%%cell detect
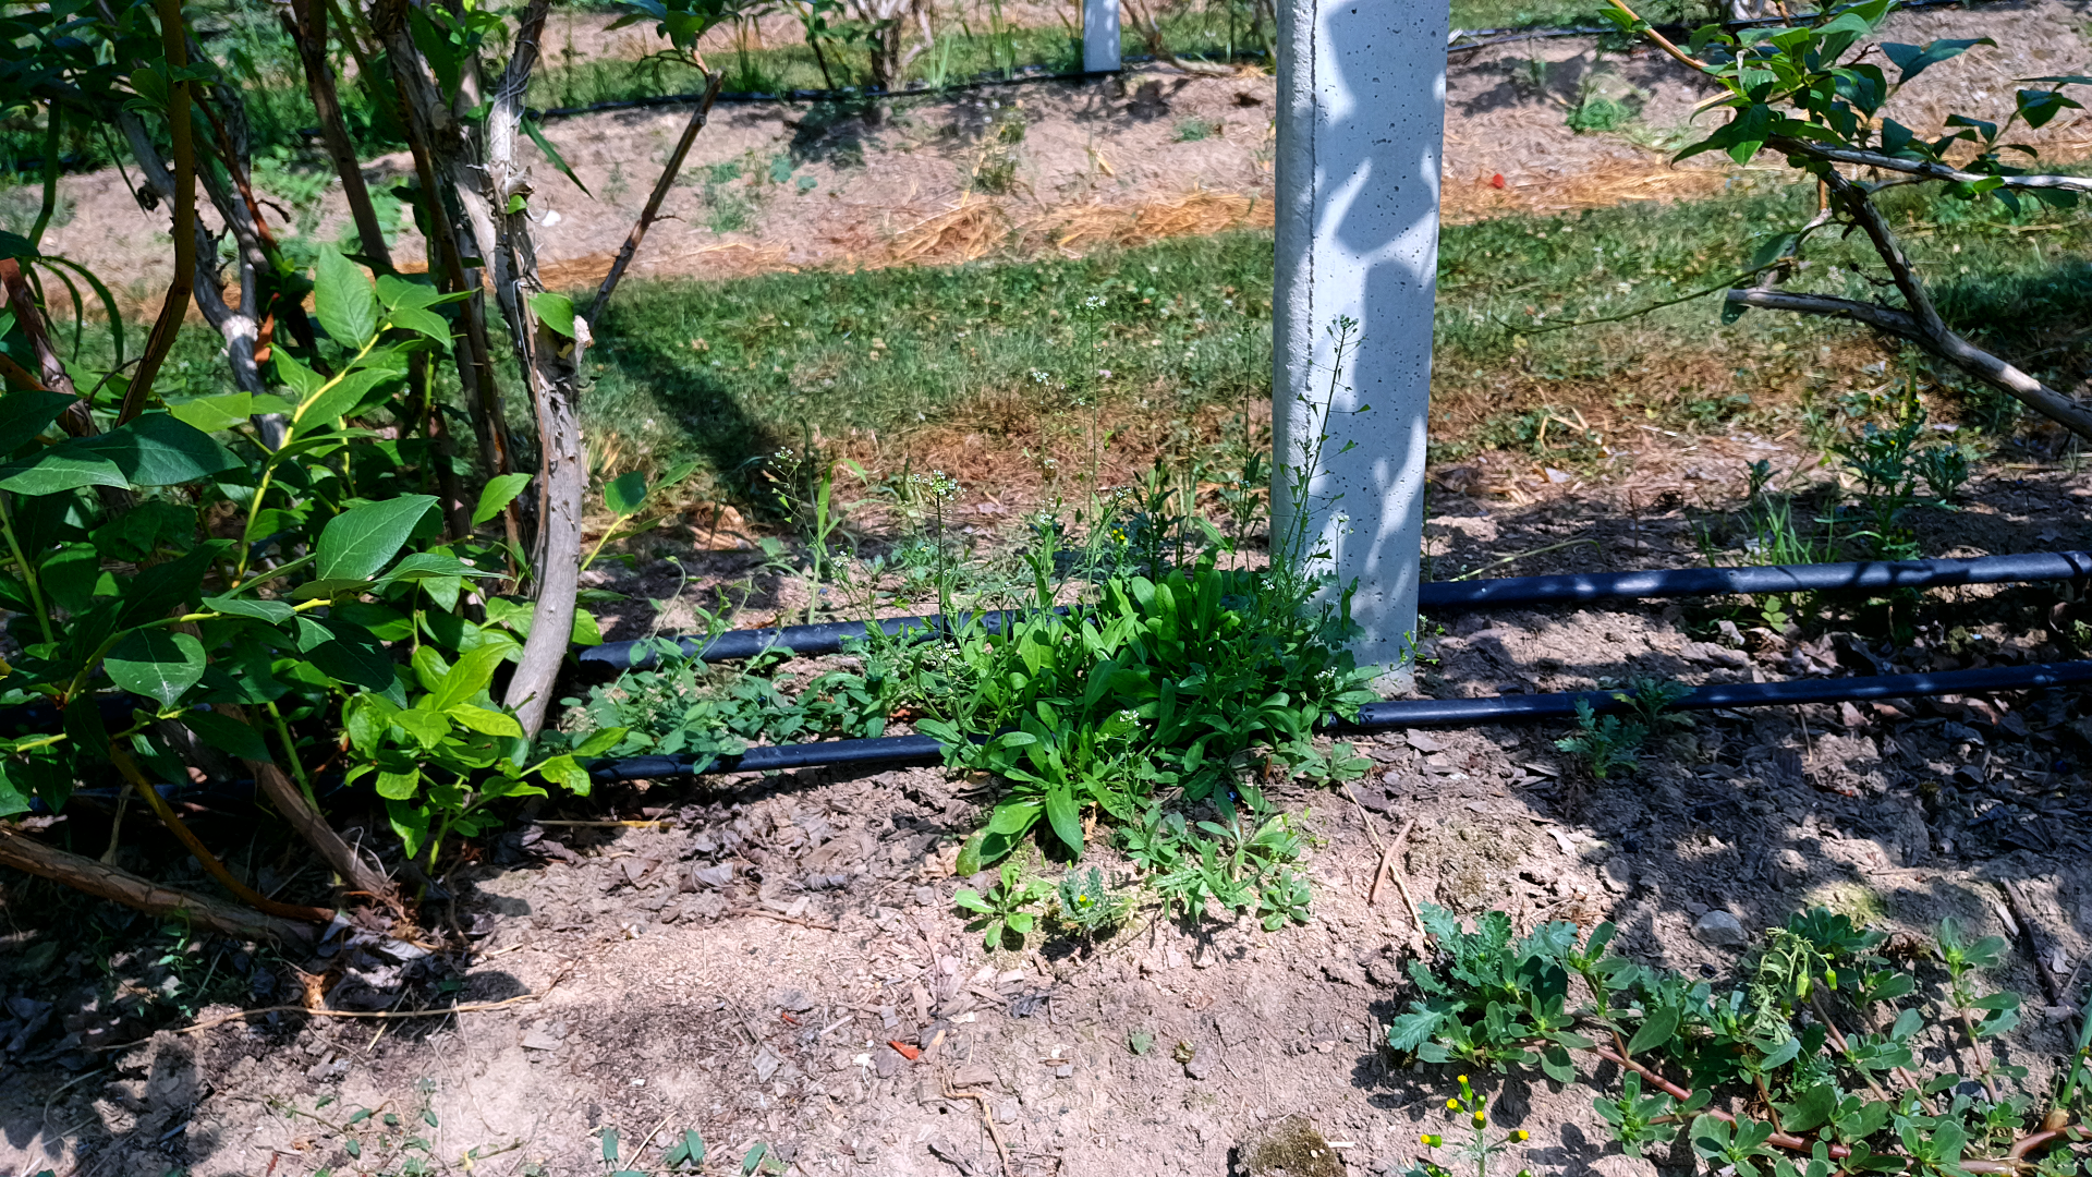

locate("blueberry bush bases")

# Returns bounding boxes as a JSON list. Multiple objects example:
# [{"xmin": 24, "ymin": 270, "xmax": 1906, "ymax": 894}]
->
[
  {"xmin": 1130, "ymin": 17, "xmax": 1187, "ymax": 70},
  {"xmin": 3, "ymin": 458, "xmax": 603, "ymax": 1034},
  {"xmin": 800, "ymin": 25, "xmax": 939, "ymax": 131}
]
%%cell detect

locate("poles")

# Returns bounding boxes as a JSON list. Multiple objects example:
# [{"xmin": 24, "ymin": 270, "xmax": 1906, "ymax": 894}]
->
[
  {"xmin": 1228, "ymin": 0, "xmax": 1488, "ymax": 715},
  {"xmin": 1080, "ymin": 4, "xmax": 1122, "ymax": 78}
]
